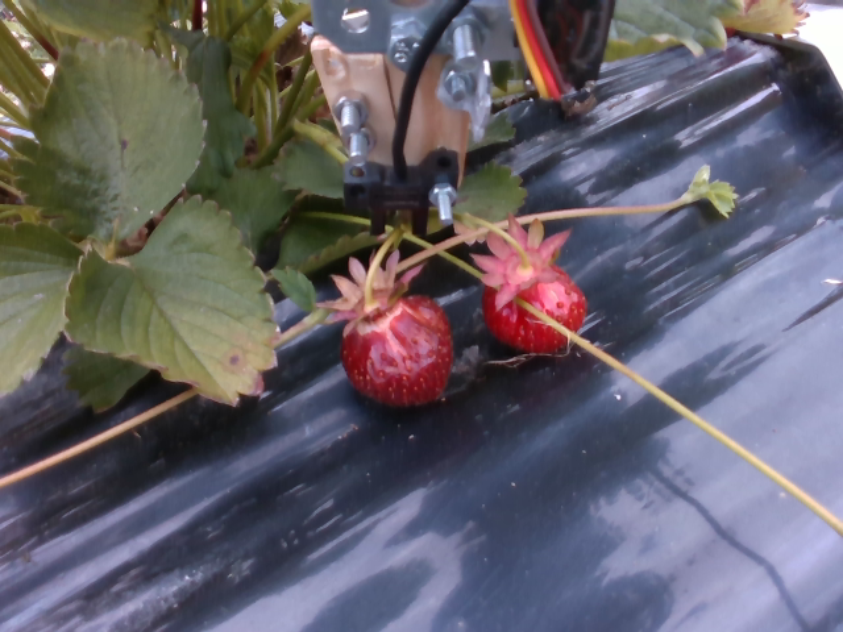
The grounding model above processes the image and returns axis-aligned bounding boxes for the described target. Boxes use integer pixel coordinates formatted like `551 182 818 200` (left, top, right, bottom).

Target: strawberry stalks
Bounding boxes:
360 224 407 336
465 215 540 285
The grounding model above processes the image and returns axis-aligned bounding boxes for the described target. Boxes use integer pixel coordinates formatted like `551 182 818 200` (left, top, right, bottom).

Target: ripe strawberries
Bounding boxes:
488 255 583 353
343 297 457 408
